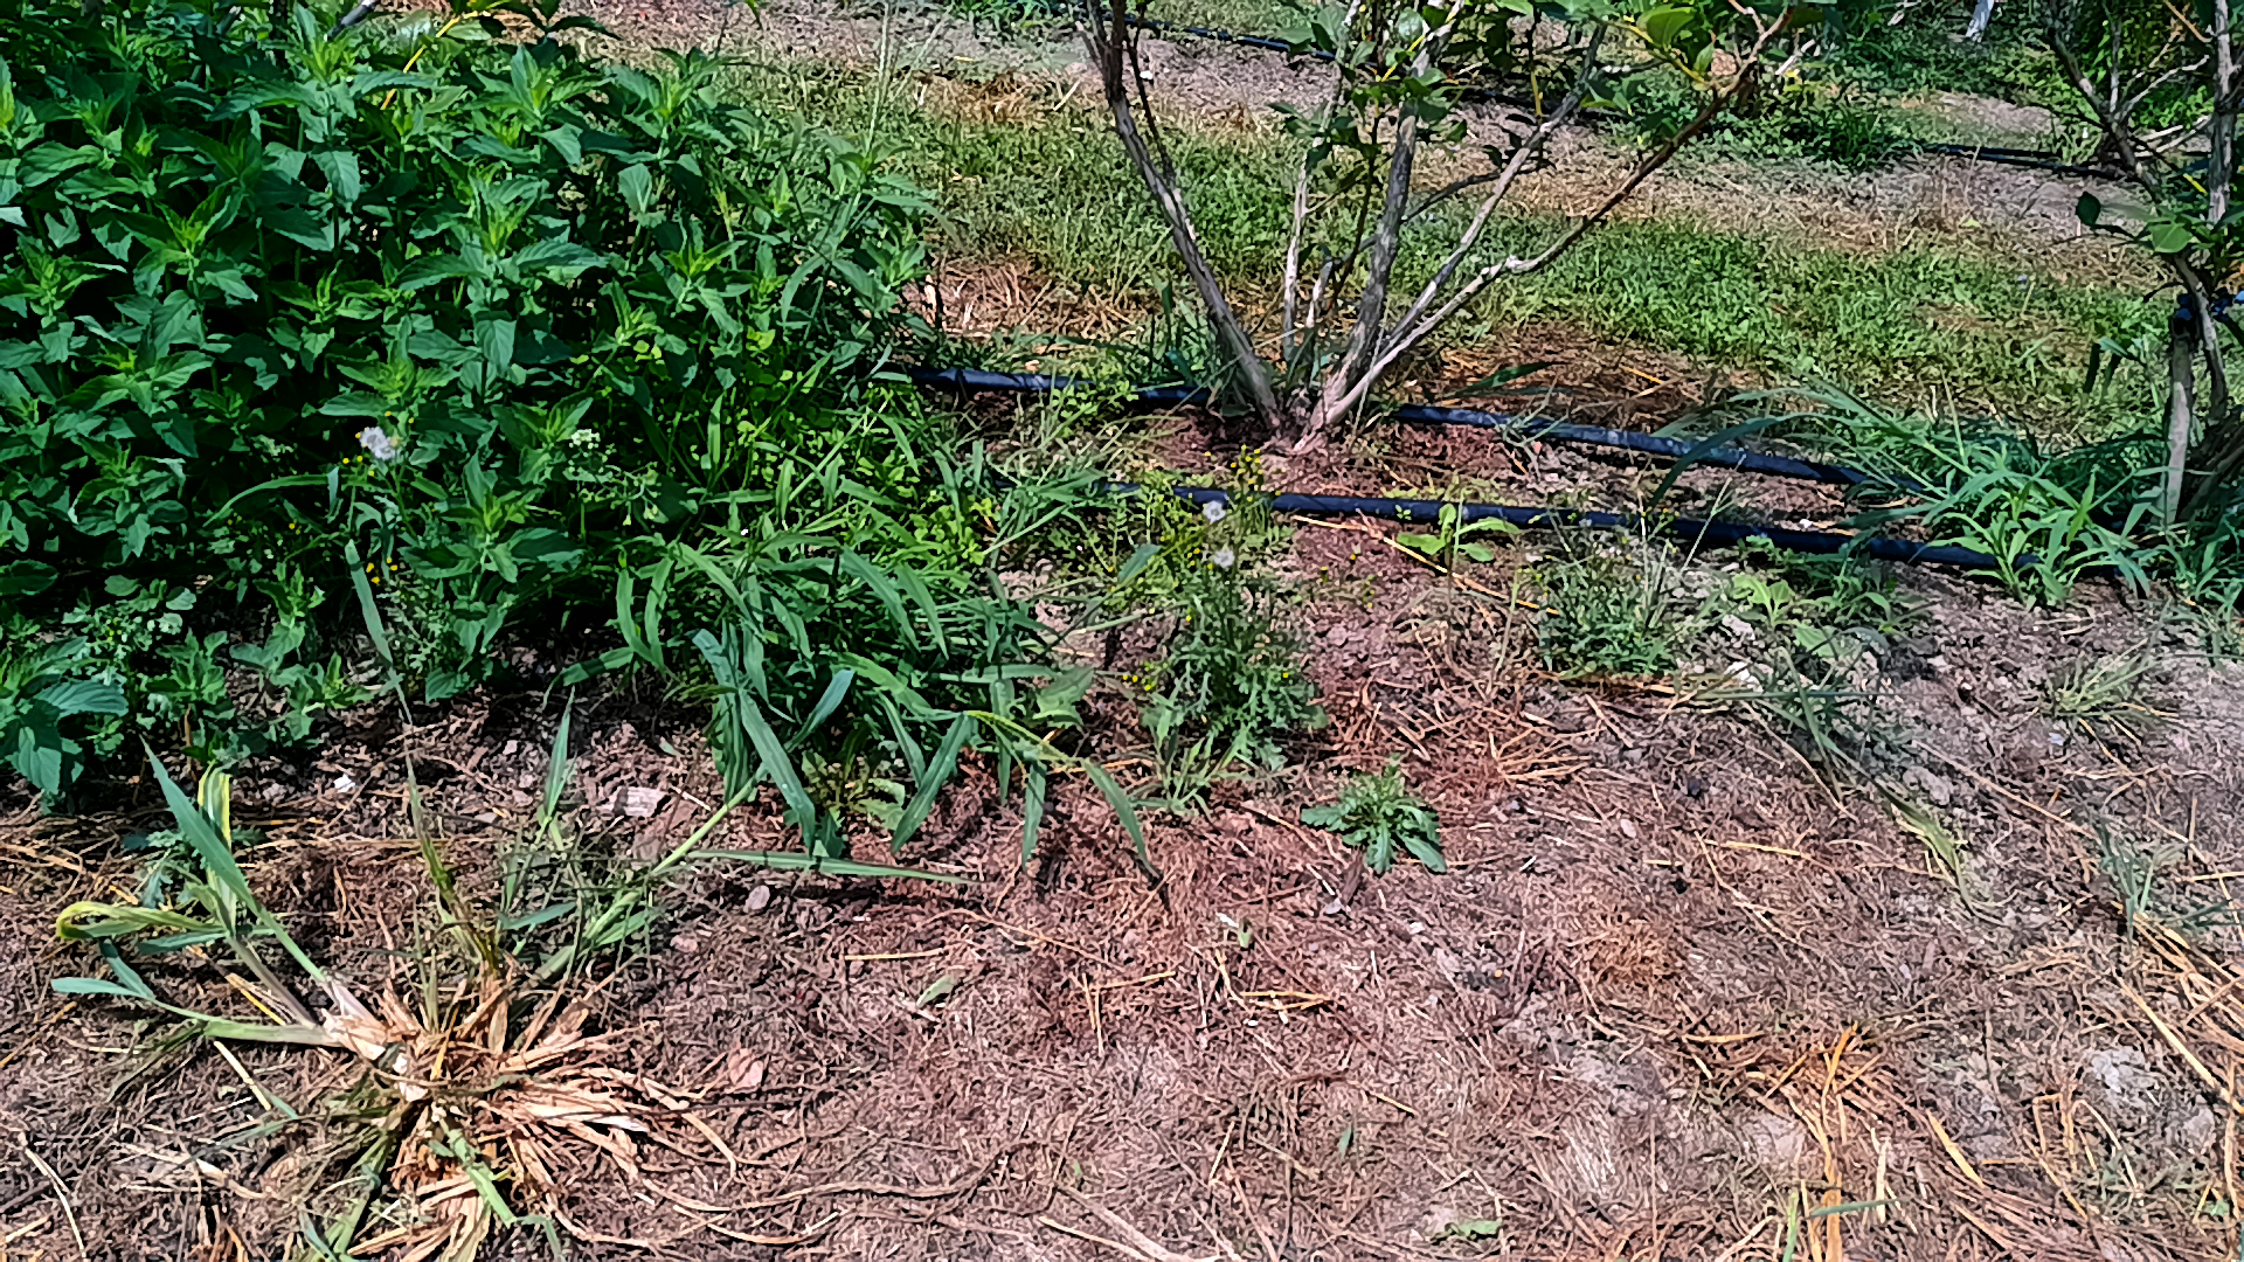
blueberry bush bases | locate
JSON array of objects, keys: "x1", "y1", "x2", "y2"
[
  {"x1": 1127, "y1": 247, "x2": 1525, "y2": 515},
  {"x1": 2133, "y1": 400, "x2": 2241, "y2": 611}
]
